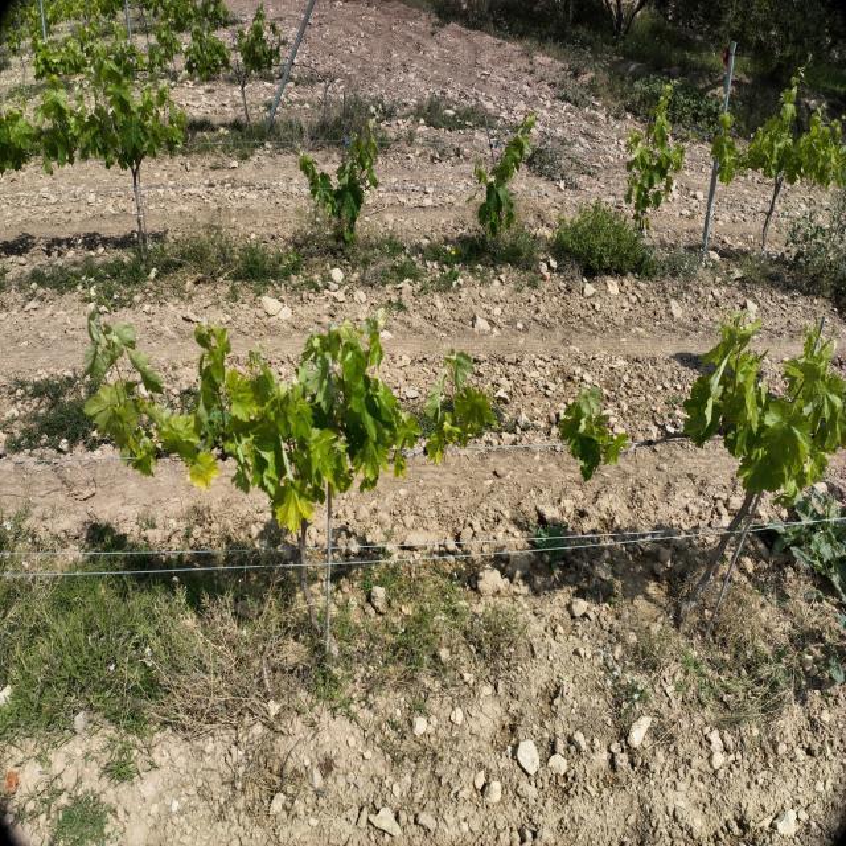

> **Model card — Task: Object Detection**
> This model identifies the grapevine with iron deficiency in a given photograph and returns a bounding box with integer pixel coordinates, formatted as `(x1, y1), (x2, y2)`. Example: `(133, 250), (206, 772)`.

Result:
(75, 303), (510, 661)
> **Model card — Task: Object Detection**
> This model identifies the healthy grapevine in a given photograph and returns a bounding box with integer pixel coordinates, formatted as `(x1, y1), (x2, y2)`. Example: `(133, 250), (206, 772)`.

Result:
(554, 309), (846, 622)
